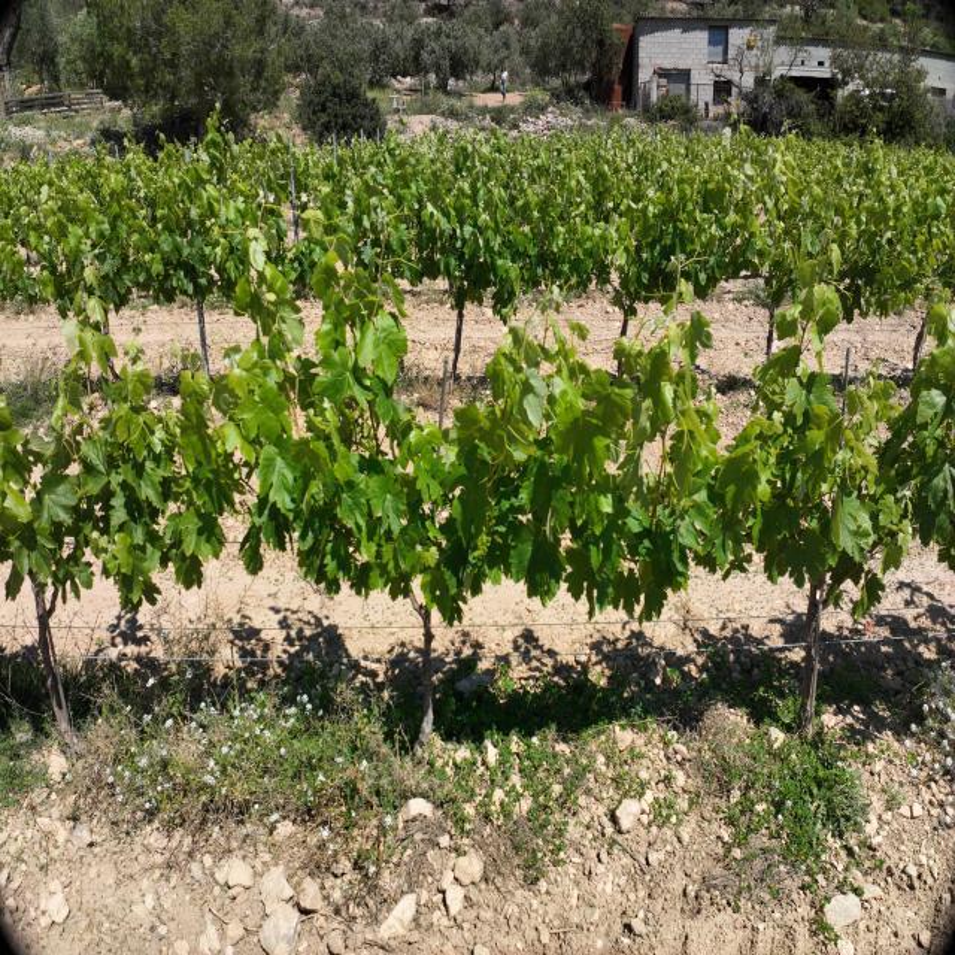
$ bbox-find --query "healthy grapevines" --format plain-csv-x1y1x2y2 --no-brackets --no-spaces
704,285,955,770
0,294,248,779
224,276,707,789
